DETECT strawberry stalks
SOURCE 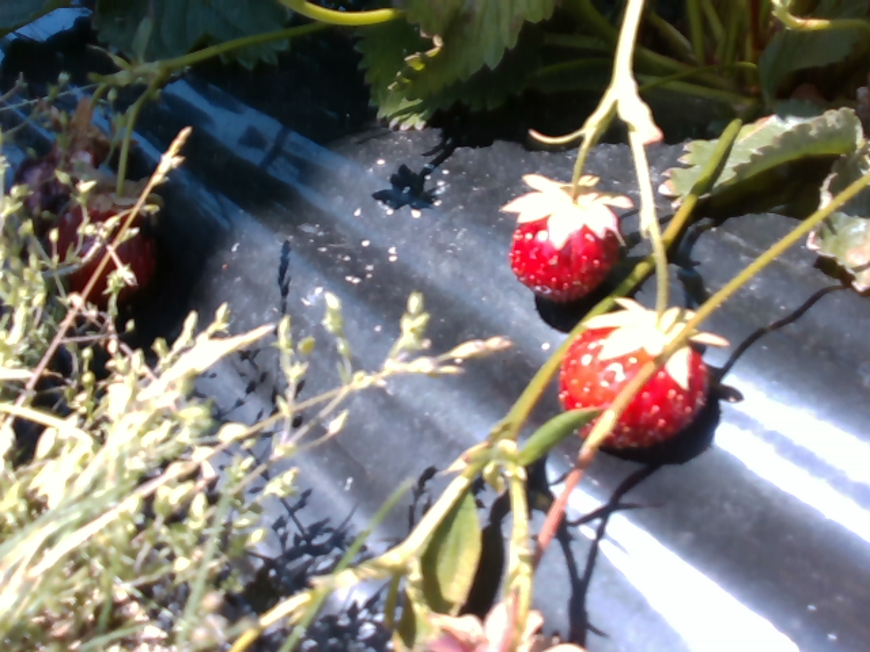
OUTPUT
[634,208,683,334]
[563,104,602,230]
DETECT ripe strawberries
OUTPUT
[562,317,710,447]
[516,205,613,296]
